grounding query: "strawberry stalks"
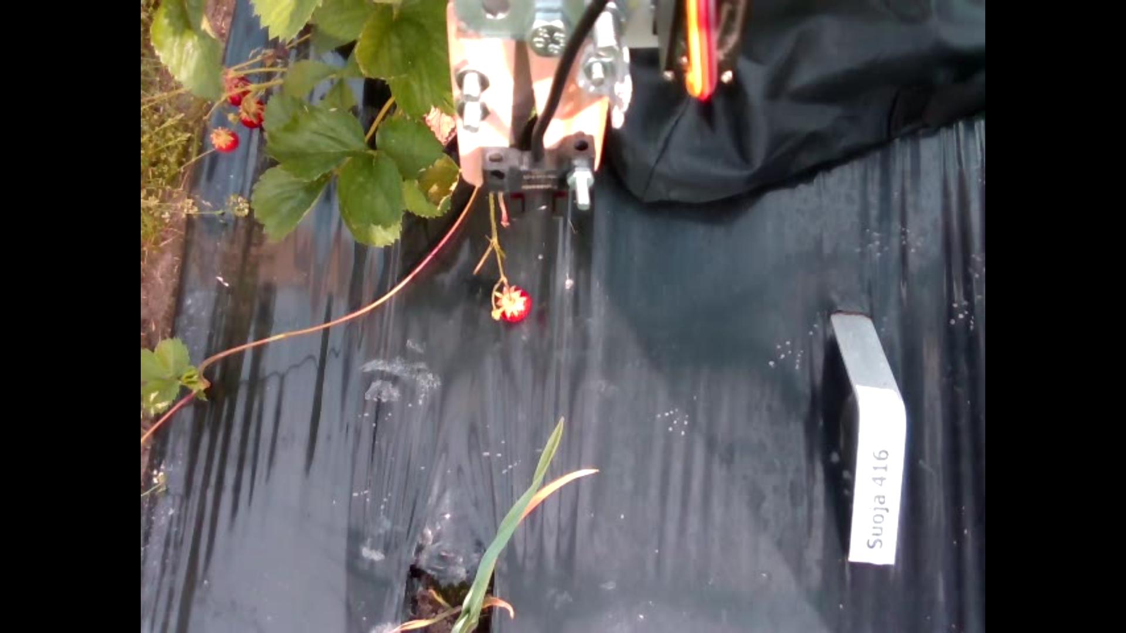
[492,265,515,295]
[226,63,258,81]
[245,87,270,105]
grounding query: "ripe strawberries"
[210,123,240,154]
[215,72,250,104]
[230,98,269,127]
[489,283,537,328]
